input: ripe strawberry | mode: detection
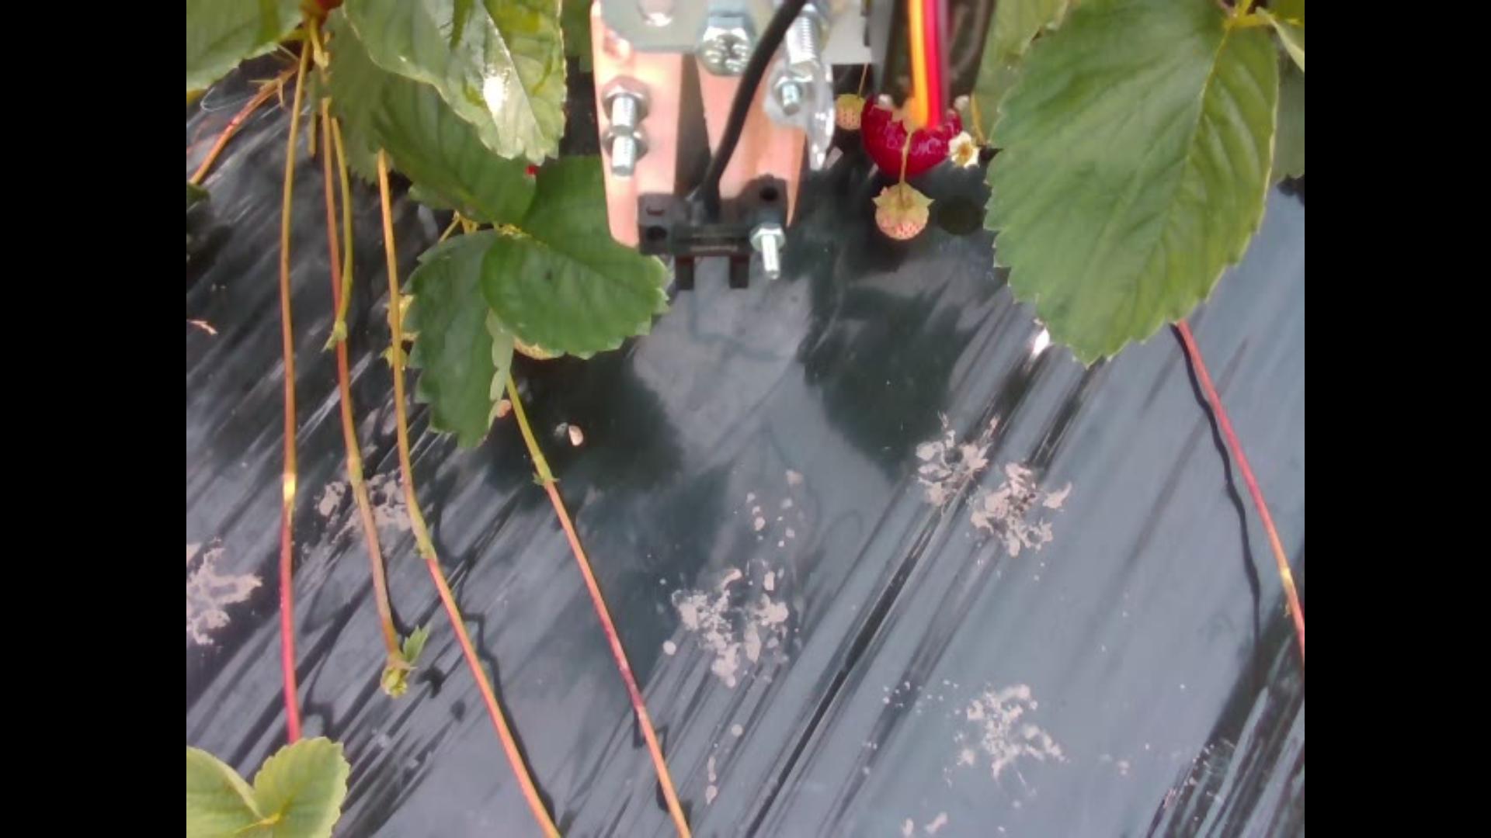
[849,87,961,179]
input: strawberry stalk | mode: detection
[888,160,917,210]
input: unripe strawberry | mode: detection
[871,191,937,245]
